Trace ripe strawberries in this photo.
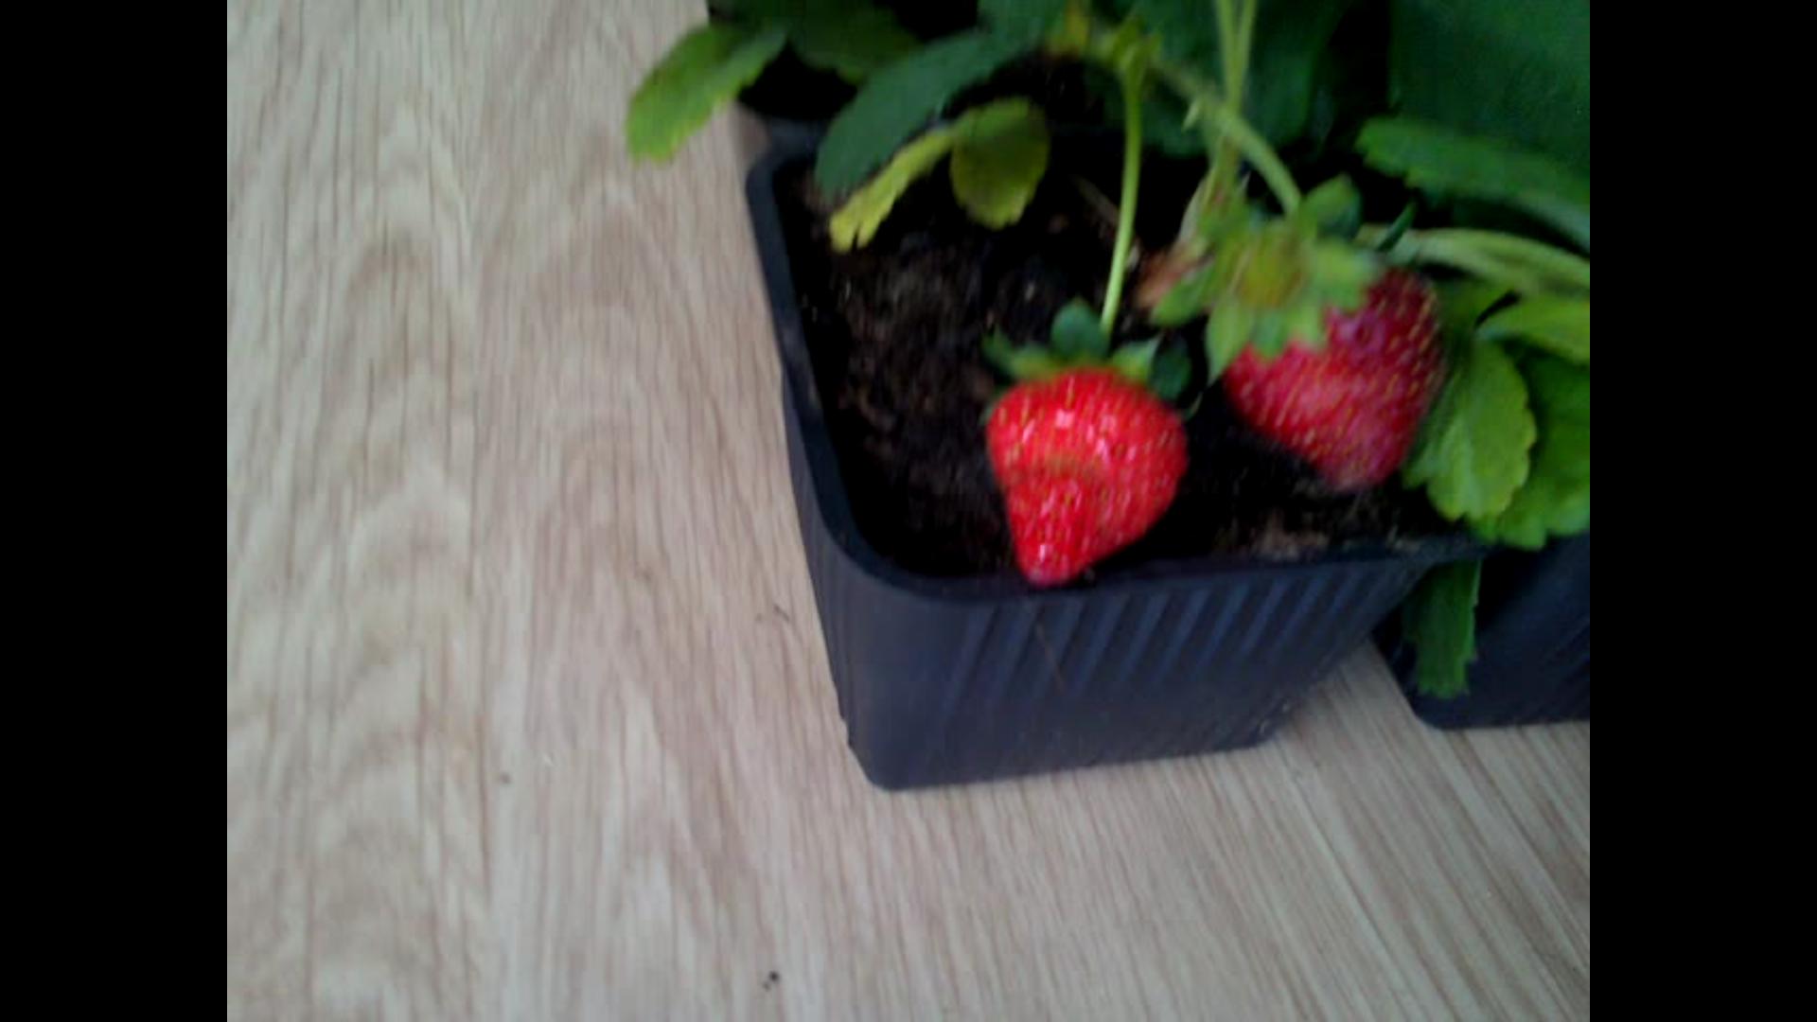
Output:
[1213,208,1490,502]
[984,343,1206,588]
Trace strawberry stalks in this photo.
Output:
[1071,101,1174,408]
[1187,115,1354,317]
